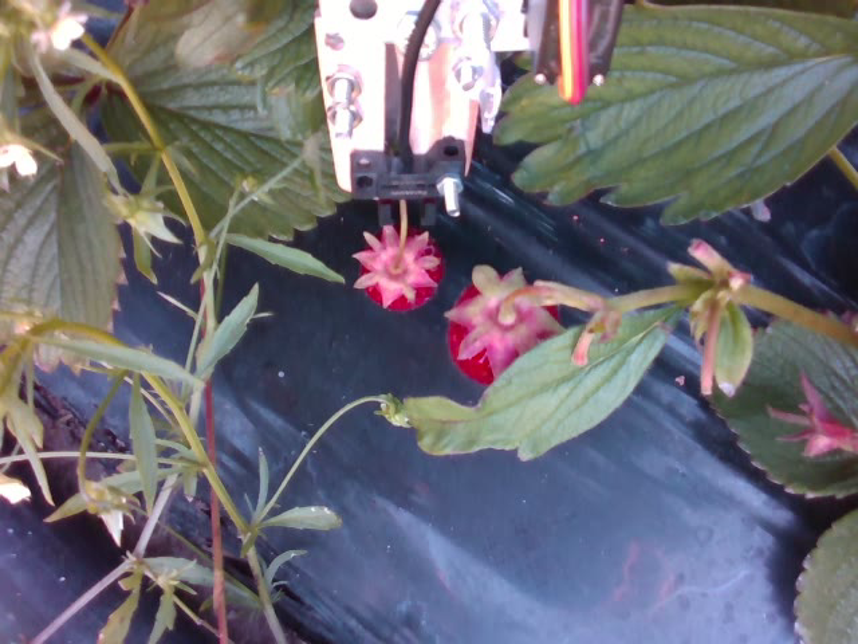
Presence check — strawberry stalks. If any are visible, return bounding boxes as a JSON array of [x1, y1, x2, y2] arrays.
[[485, 280, 602, 328], [379, 197, 419, 284]]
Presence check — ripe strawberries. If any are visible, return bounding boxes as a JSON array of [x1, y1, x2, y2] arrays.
[[358, 226, 454, 311], [454, 279, 568, 381]]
